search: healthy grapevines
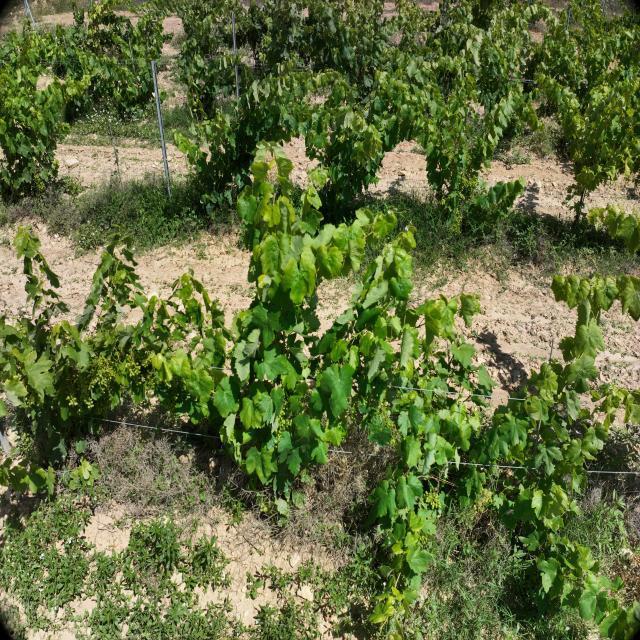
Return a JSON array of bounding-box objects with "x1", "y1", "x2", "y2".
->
[
  {"x1": 388, "y1": 276, "x2": 640, "y2": 639},
  {"x1": 157, "y1": 181, "x2": 397, "y2": 541},
  {"x1": 0, "y1": 217, "x2": 160, "y2": 508}
]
